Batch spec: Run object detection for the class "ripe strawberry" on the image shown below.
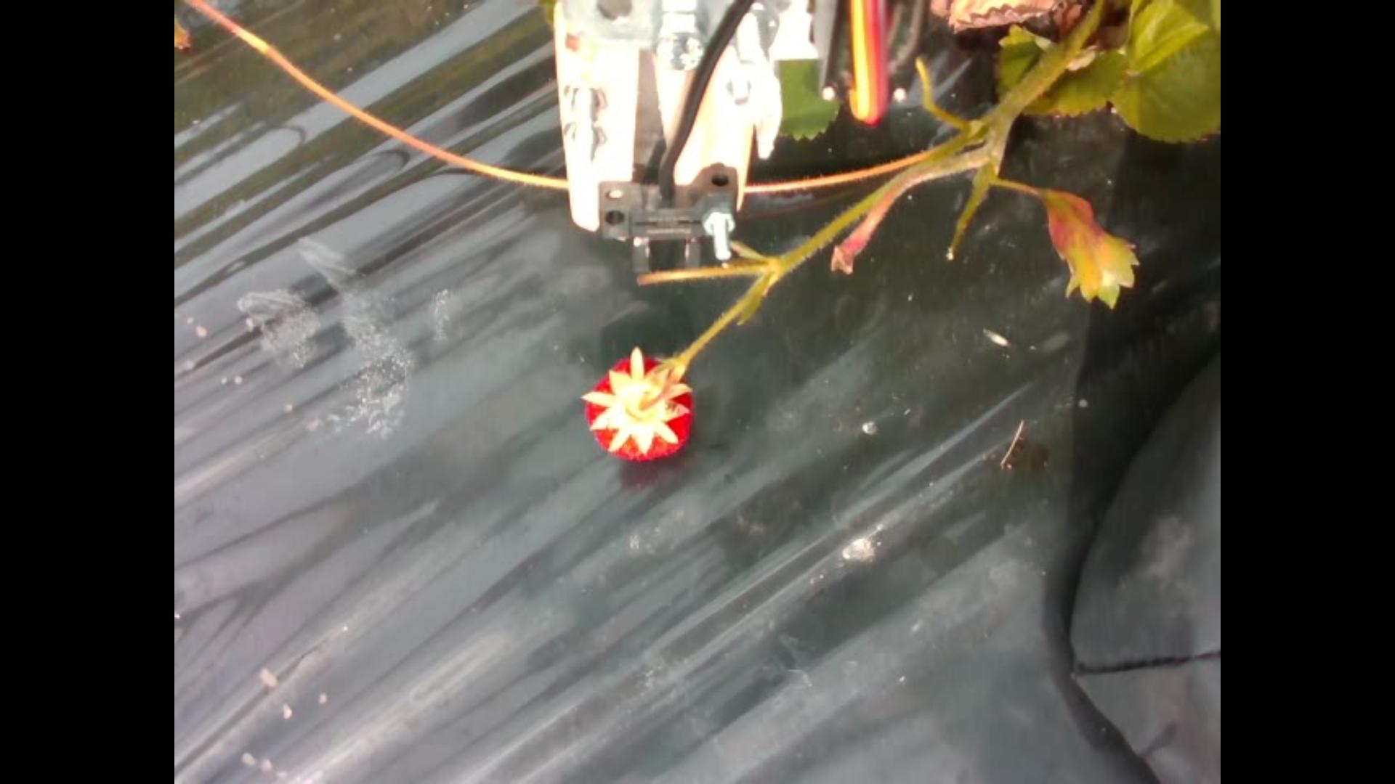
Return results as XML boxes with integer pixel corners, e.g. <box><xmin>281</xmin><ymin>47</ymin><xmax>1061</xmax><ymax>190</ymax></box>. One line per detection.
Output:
<box><xmin>570</xmin><ymin>349</ymin><xmax>711</xmax><ymax>465</ymax></box>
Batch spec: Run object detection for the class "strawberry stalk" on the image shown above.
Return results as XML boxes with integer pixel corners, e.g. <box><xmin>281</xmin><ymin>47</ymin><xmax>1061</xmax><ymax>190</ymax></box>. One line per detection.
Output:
<box><xmin>641</xmin><ymin>281</ymin><xmax>772</xmax><ymax>400</ymax></box>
